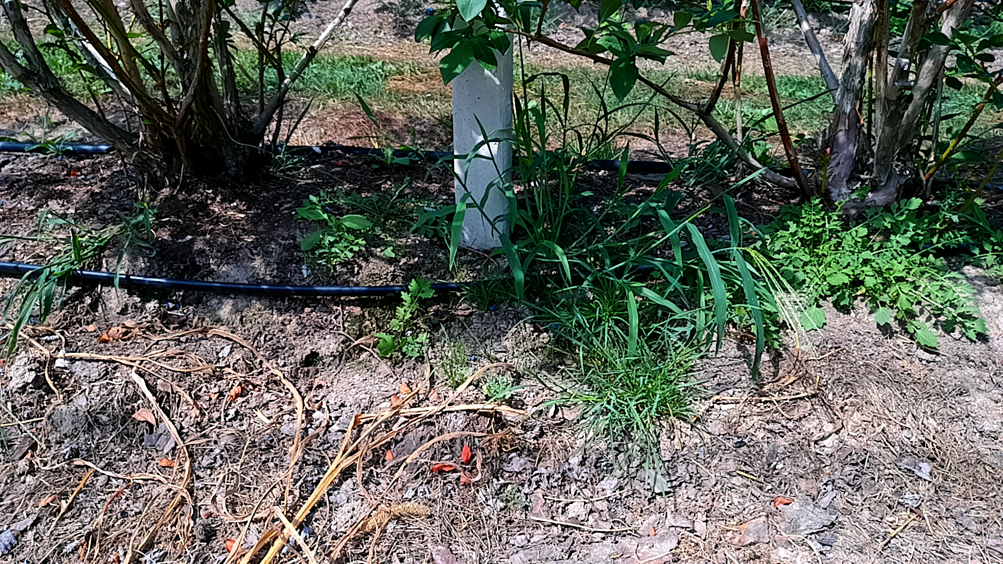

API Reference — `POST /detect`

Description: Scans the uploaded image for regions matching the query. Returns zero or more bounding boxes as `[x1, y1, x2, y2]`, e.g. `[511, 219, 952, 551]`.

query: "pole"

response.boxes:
[440, 47, 521, 273]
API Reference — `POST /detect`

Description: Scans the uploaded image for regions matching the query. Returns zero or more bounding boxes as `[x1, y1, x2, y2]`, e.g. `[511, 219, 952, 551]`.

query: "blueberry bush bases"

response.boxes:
[744, 75, 984, 276]
[55, 62, 321, 227]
